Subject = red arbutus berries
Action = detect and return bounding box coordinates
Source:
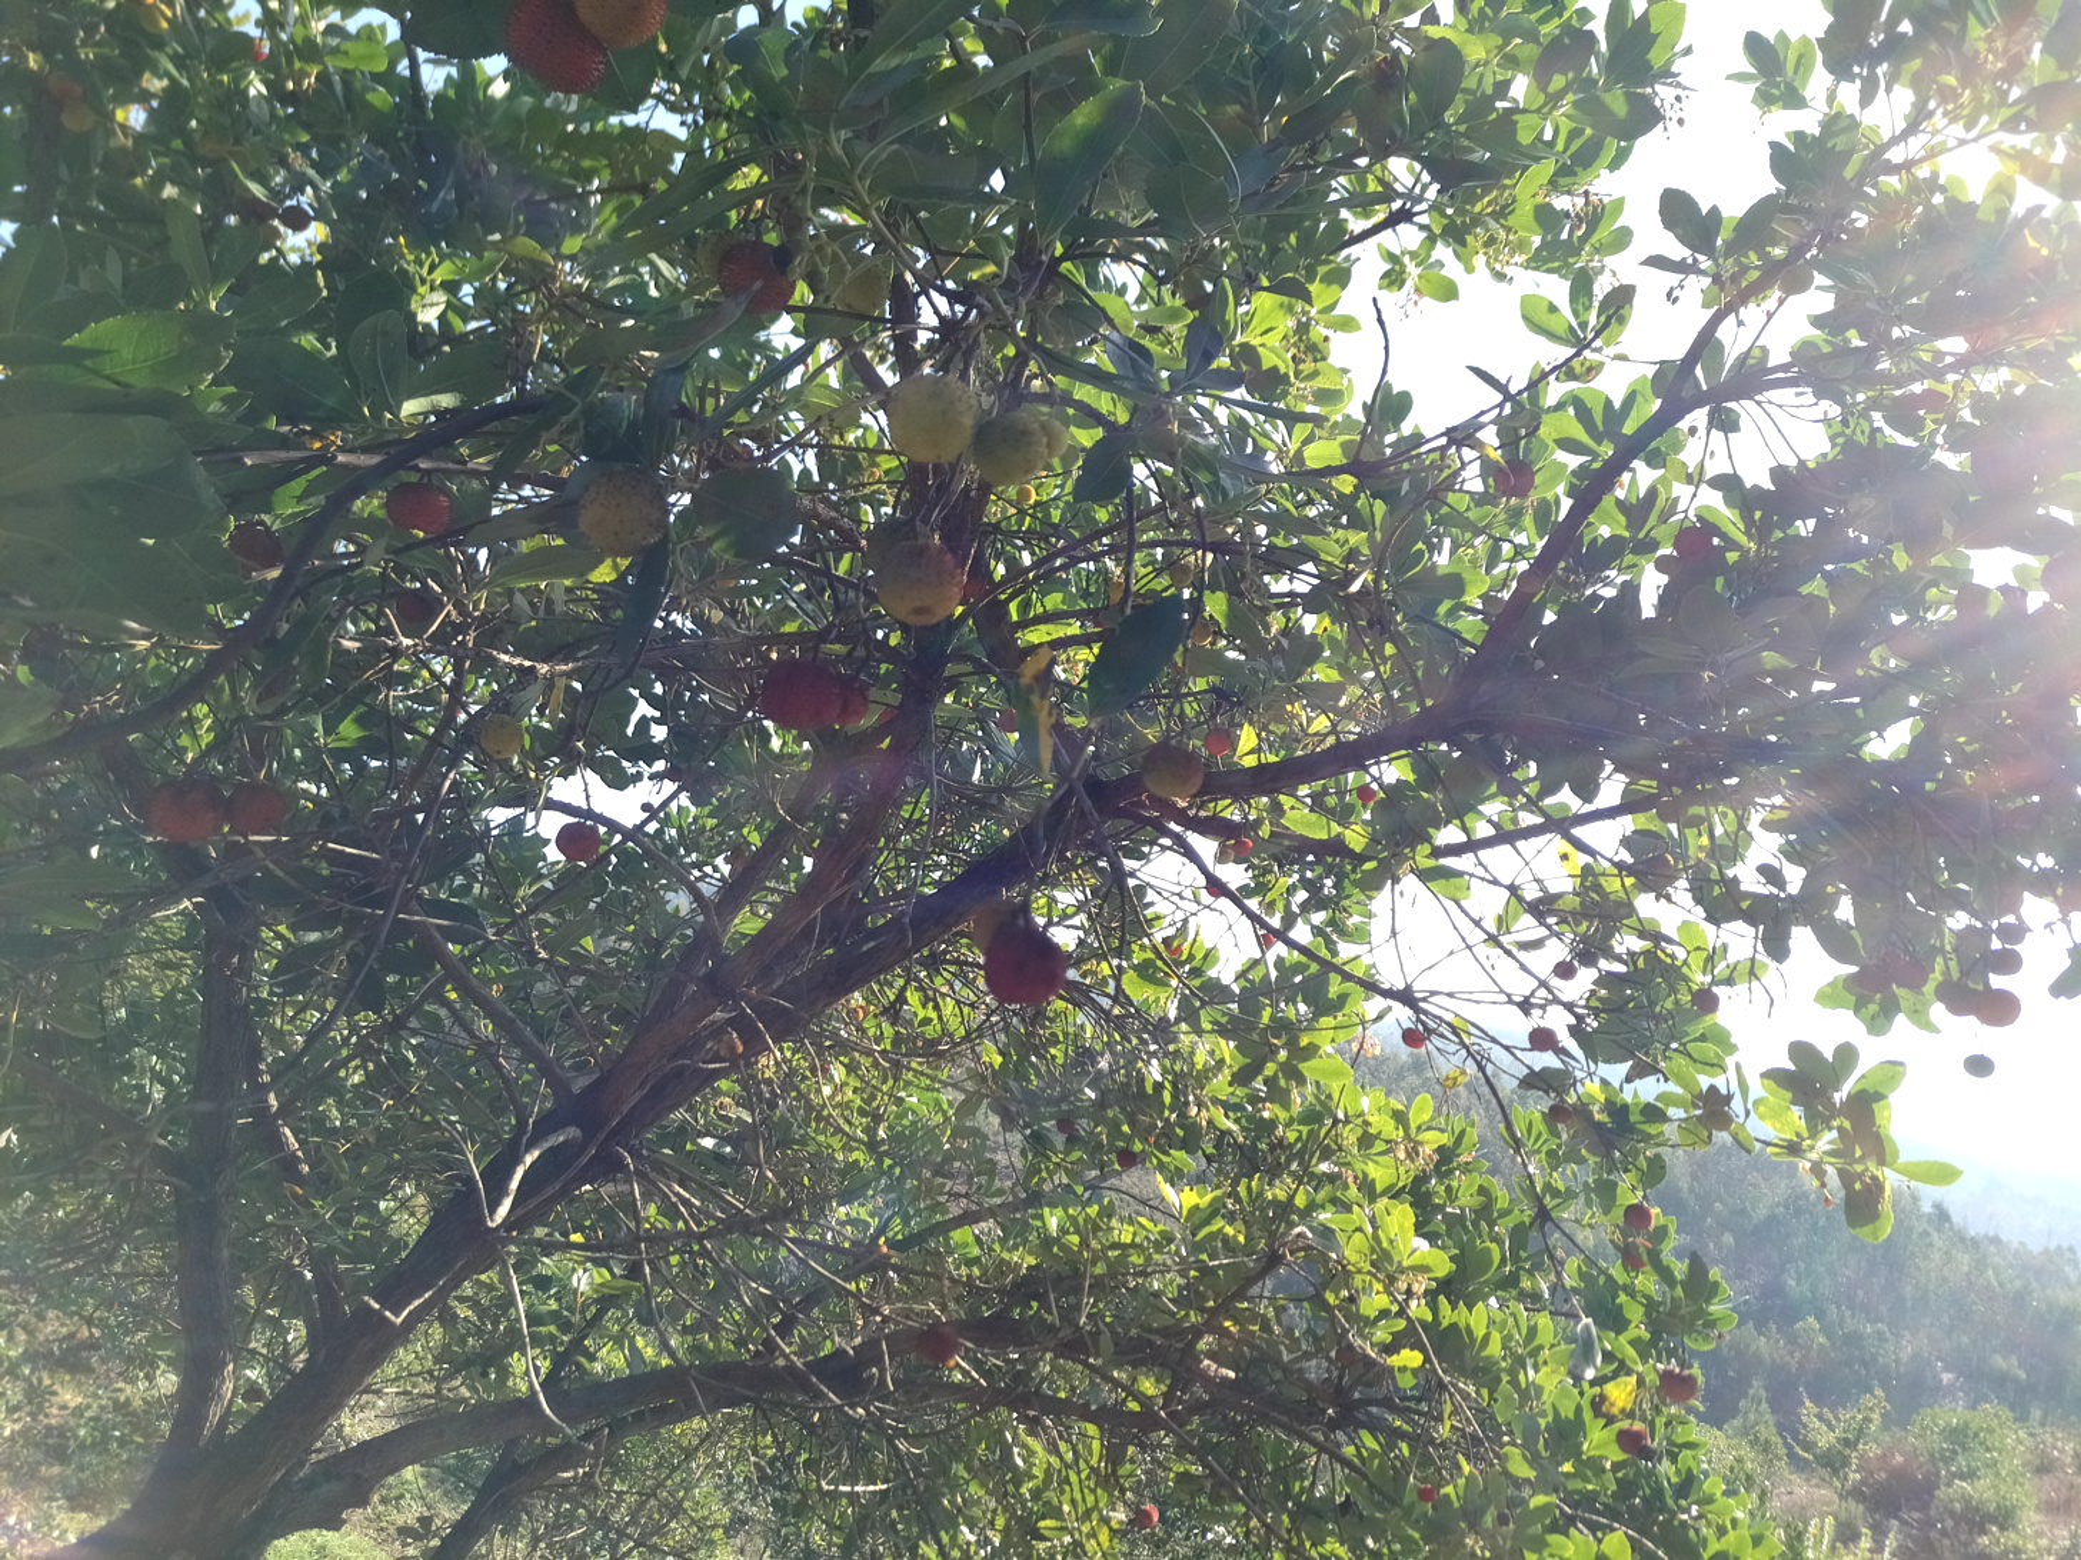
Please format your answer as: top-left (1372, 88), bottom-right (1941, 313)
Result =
top-left (1402, 1025), bottom-right (1427, 1050)
top-left (556, 817), bottom-right (600, 860)
top-left (1672, 522), bottom-right (1717, 560)
top-left (1621, 1202), bottom-right (1653, 1229)
top-left (716, 240), bottom-right (797, 315)
top-left (1163, 934), bottom-right (1186, 958)
top-left (1553, 961), bottom-right (1579, 982)
top-left (1116, 1149), bottom-right (1139, 1169)
top-left (1528, 1026), bottom-right (1560, 1052)
top-left (826, 673), bottom-right (866, 728)
top-left (1492, 456), bottom-right (1537, 498)
top-left (383, 477), bottom-right (458, 536)
top-left (984, 919), bottom-right (1065, 1008)
top-left (1262, 932), bottom-right (1276, 948)
top-left (508, 0), bottom-right (615, 92)
top-left (918, 1322), bottom-right (961, 1369)
top-left (1616, 1423), bottom-right (1649, 1453)
top-left (760, 657), bottom-right (844, 730)
top-left (227, 524), bottom-right (281, 569)
top-left (1233, 834), bottom-right (1254, 858)
top-left (142, 773), bottom-right (226, 841)
top-left (1621, 1234), bottom-right (1654, 1269)
top-left (1691, 988), bottom-right (1723, 1014)
top-left (1133, 1504), bottom-right (1159, 1529)
top-left (1204, 727), bottom-right (1233, 756)
top-left (226, 779), bottom-right (290, 833)
top-left (1356, 785), bottom-right (1377, 802)
top-left (997, 707), bottom-right (1025, 730)
top-left (1548, 1100), bottom-right (1577, 1125)
top-left (1419, 1483), bottom-right (1436, 1501)
top-left (1658, 1367), bottom-right (1698, 1404)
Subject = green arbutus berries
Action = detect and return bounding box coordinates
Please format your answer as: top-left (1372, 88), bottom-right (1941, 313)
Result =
top-left (1778, 265), bottom-right (1817, 295)
top-left (138, 0), bottom-right (181, 35)
top-left (59, 102), bottom-right (98, 132)
top-left (976, 408), bottom-right (1055, 491)
top-left (878, 374), bottom-right (978, 464)
top-left (1169, 561), bottom-right (1191, 585)
top-left (480, 712), bottom-right (525, 754)
top-left (826, 249), bottom-right (893, 314)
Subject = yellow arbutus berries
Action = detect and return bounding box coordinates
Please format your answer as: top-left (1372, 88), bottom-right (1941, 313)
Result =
top-left (572, 1), bottom-right (667, 56)
top-left (878, 539), bottom-right (965, 627)
top-left (1190, 622), bottom-right (1213, 646)
top-left (858, 512), bottom-right (930, 567)
top-left (1143, 742), bottom-right (1205, 798)
top-left (1014, 483), bottom-right (1038, 503)
top-left (968, 892), bottom-right (1025, 955)
top-left (575, 468), bottom-right (672, 552)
